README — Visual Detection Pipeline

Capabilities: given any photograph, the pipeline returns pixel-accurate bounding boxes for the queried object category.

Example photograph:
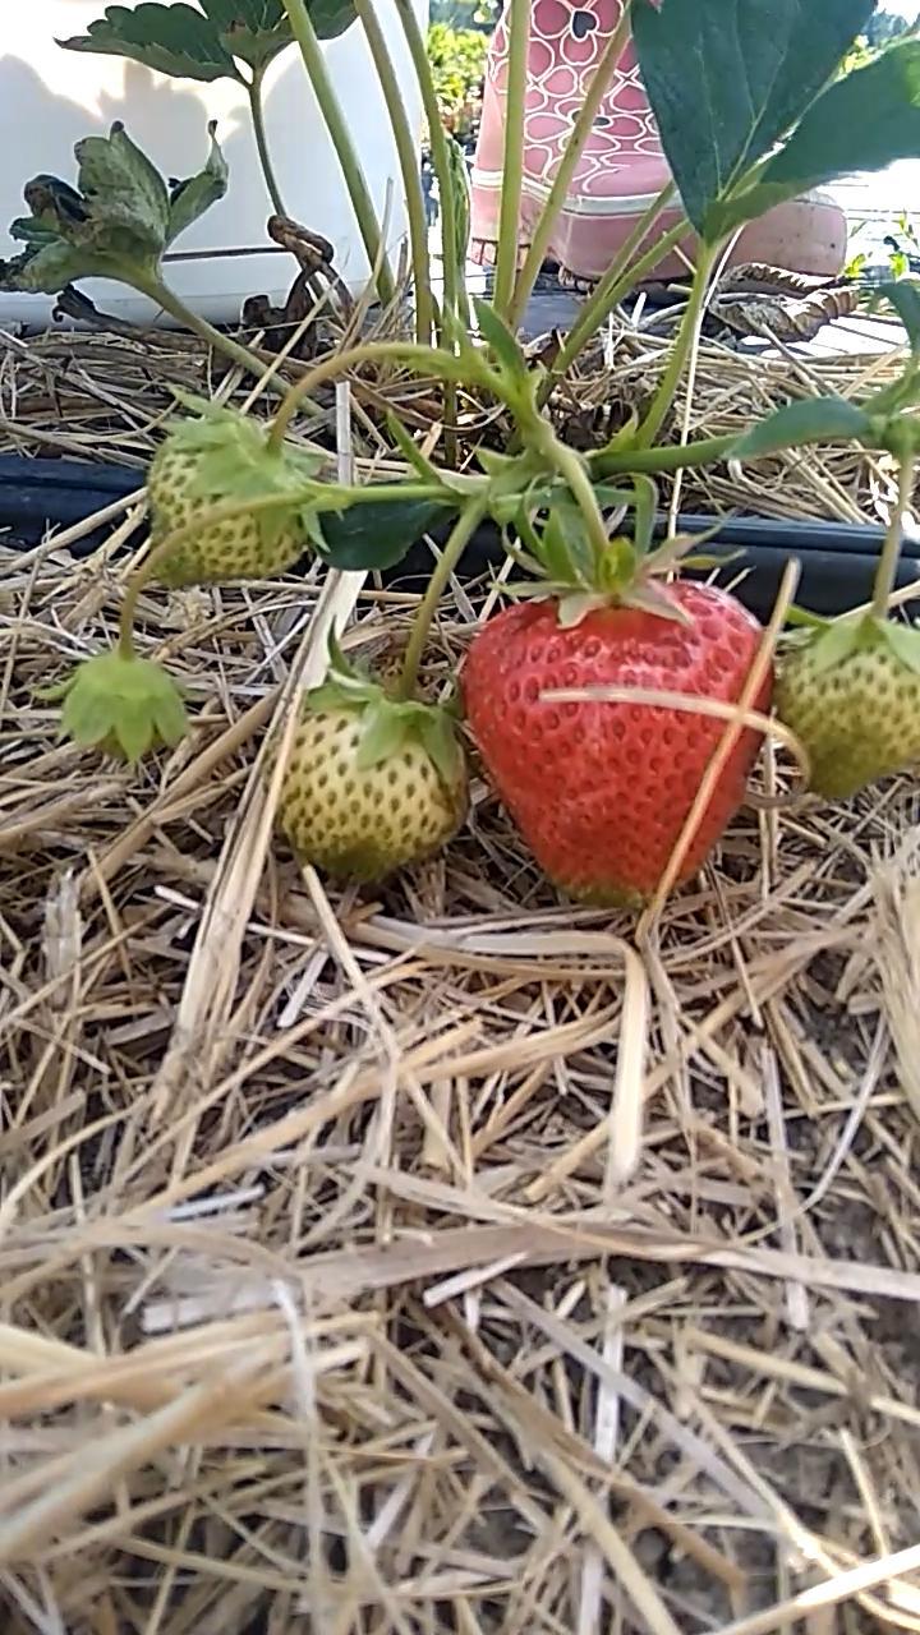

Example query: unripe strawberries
[261,658,483,889]
[70,644,193,782]
[146,407,308,605]
[785,614,920,819]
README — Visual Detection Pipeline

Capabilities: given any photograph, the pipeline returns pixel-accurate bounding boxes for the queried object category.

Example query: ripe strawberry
[475,576,779,931]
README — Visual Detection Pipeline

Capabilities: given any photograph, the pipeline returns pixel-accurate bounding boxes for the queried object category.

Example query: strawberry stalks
[102,567,156,685]
[548,492,668,616]
[258,374,313,478]
[833,505,920,680]
[377,612,446,718]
